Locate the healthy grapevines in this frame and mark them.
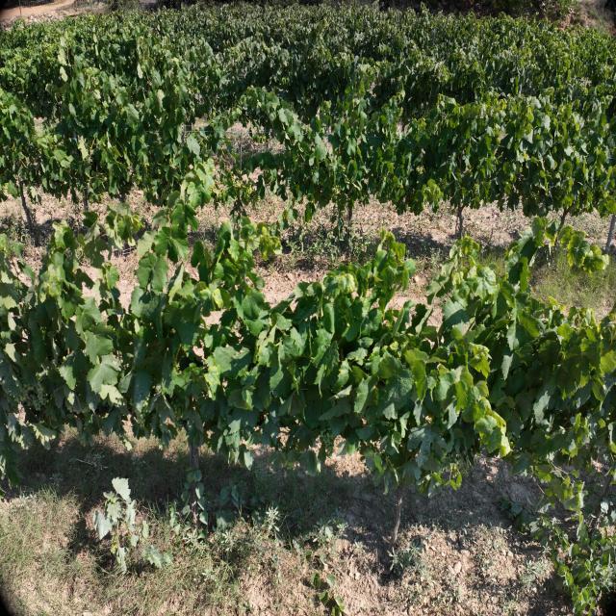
[4,224,312,551]
[505,247,616,564]
[313,230,515,582]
